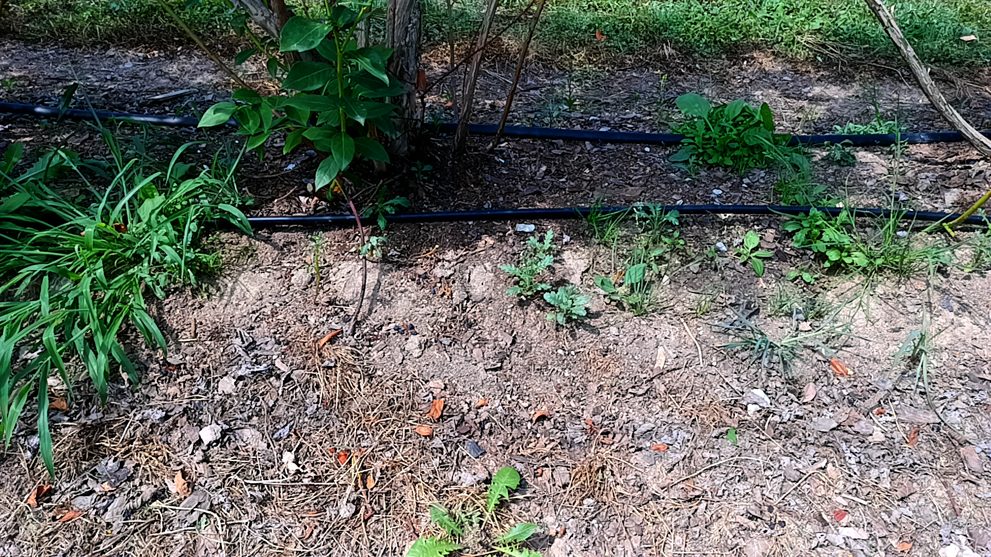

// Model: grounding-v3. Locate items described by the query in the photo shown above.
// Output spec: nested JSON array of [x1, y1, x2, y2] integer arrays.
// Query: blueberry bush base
[[284, 63, 501, 219]]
